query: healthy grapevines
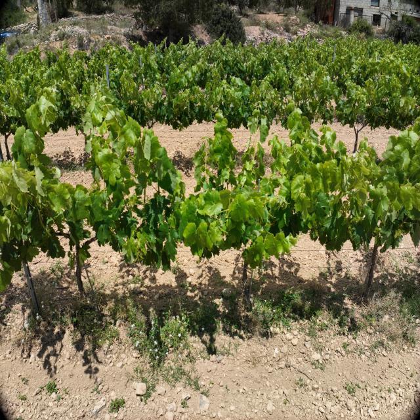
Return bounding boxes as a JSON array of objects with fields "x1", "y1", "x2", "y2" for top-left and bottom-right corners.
[
  {"x1": 283, "y1": 102, "x2": 420, "y2": 316},
  {"x1": 0, "y1": 96, "x2": 183, "y2": 311},
  {"x1": 157, "y1": 113, "x2": 324, "y2": 319}
]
